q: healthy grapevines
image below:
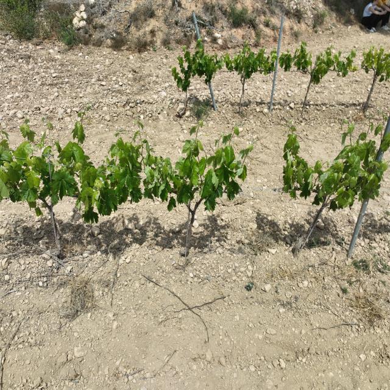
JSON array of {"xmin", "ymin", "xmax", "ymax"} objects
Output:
[
  {"xmin": 0, "ymin": 119, "xmax": 144, "ymax": 271},
  {"xmin": 275, "ymin": 126, "xmax": 390, "ymax": 268},
  {"xmin": 144, "ymin": 136, "xmax": 254, "ymax": 264}
]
